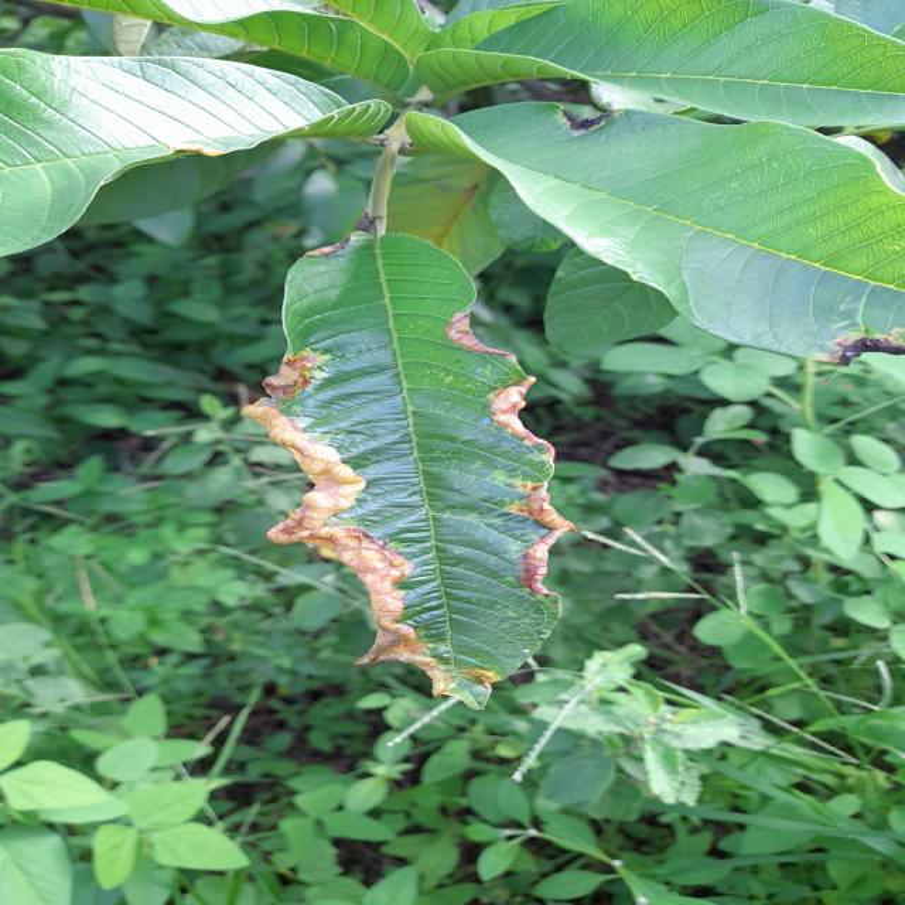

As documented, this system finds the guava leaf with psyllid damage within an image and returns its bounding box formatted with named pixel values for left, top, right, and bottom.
left=218, top=195, right=633, bottom=740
